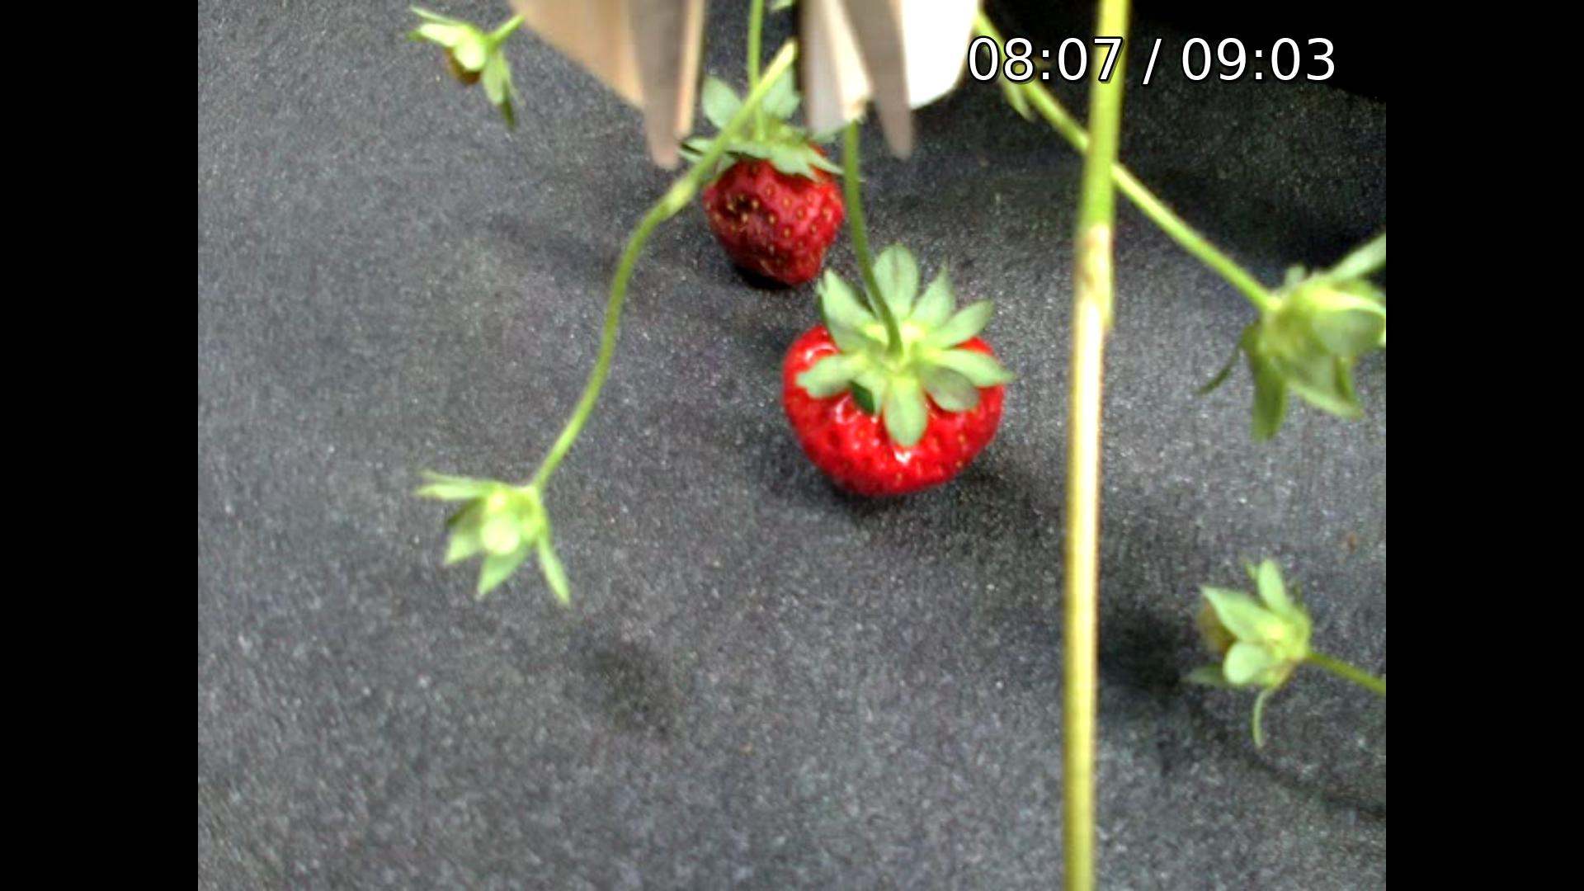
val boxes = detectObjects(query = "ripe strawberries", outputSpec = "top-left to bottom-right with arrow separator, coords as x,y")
704,145 -> 855,302
751,316 -> 1032,508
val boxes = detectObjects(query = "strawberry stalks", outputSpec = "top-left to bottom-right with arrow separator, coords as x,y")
804,130 -> 950,399
1259,604 -> 1379,712
742,0 -> 782,186
523,310 -> 585,526
1170,184 -> 1300,327
473,2 -> 560,53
